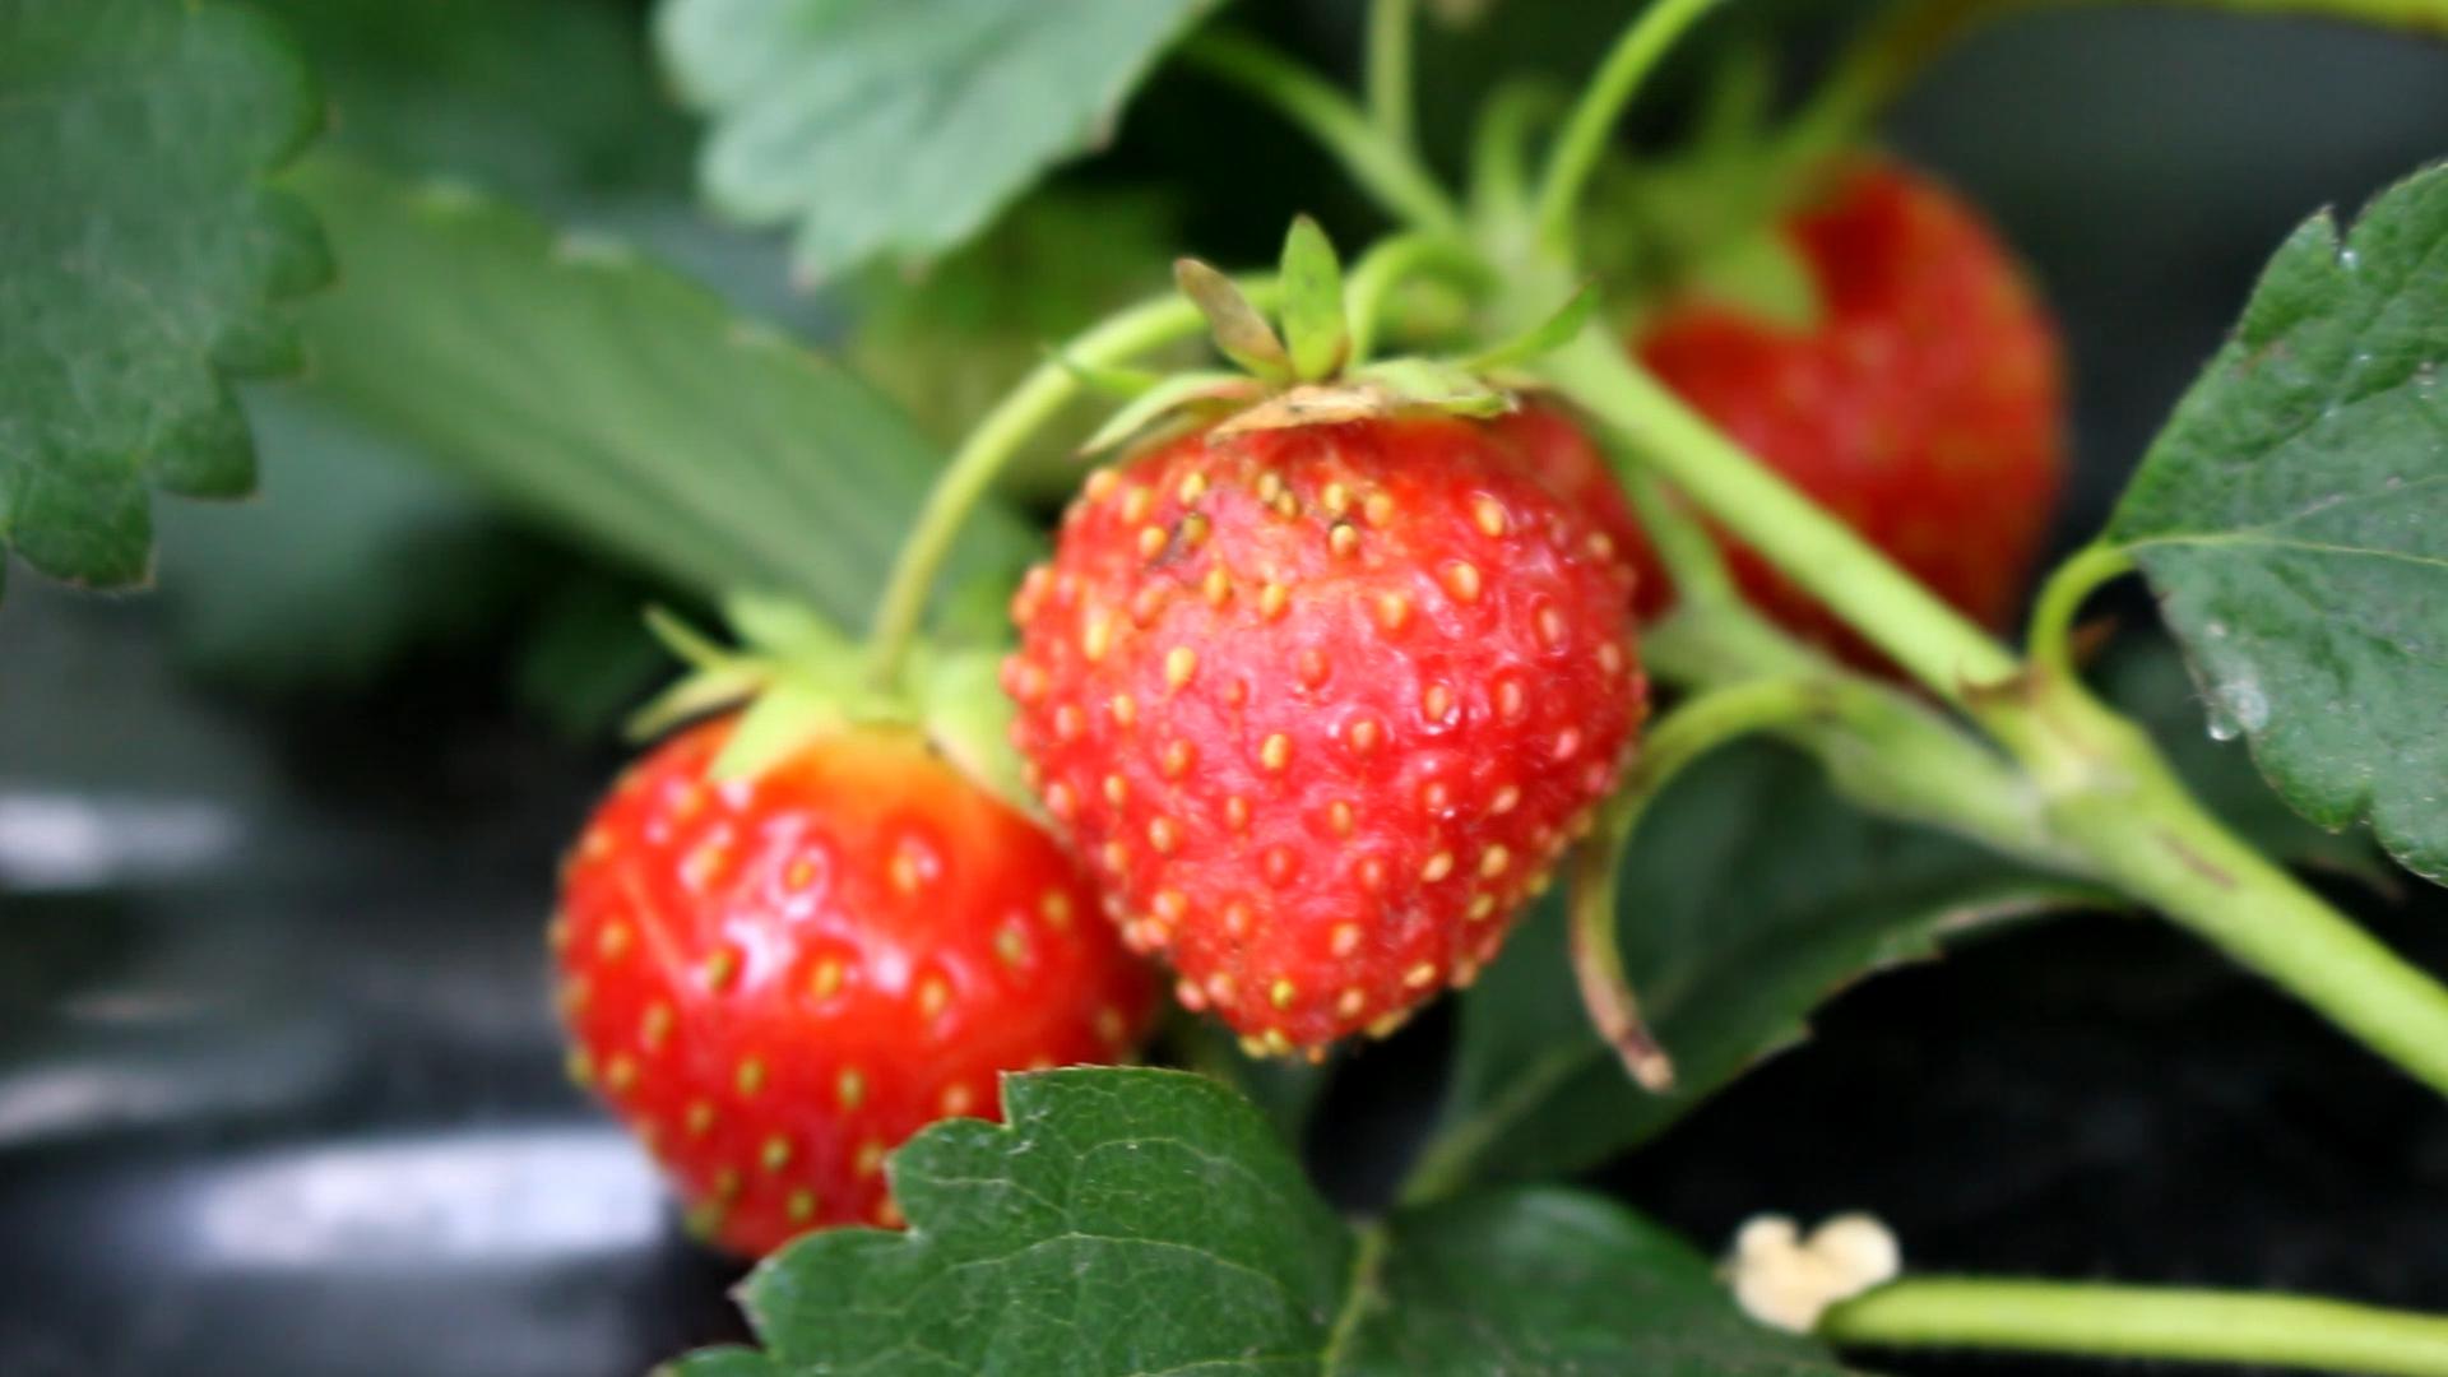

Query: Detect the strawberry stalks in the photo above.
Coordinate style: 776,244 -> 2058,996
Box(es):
1635,50 -> 1989,260
782,294 -> 1212,842
1288,167 -> 1597,397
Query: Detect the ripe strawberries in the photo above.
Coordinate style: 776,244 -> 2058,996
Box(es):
1536,197 -> 2021,627
977,350 -> 1660,1018
458,599 -> 1091,1235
